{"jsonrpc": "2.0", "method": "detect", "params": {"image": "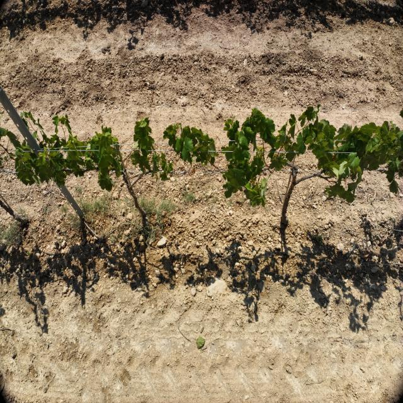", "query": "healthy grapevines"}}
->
[218,100,403,241]
[11,110,220,240]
